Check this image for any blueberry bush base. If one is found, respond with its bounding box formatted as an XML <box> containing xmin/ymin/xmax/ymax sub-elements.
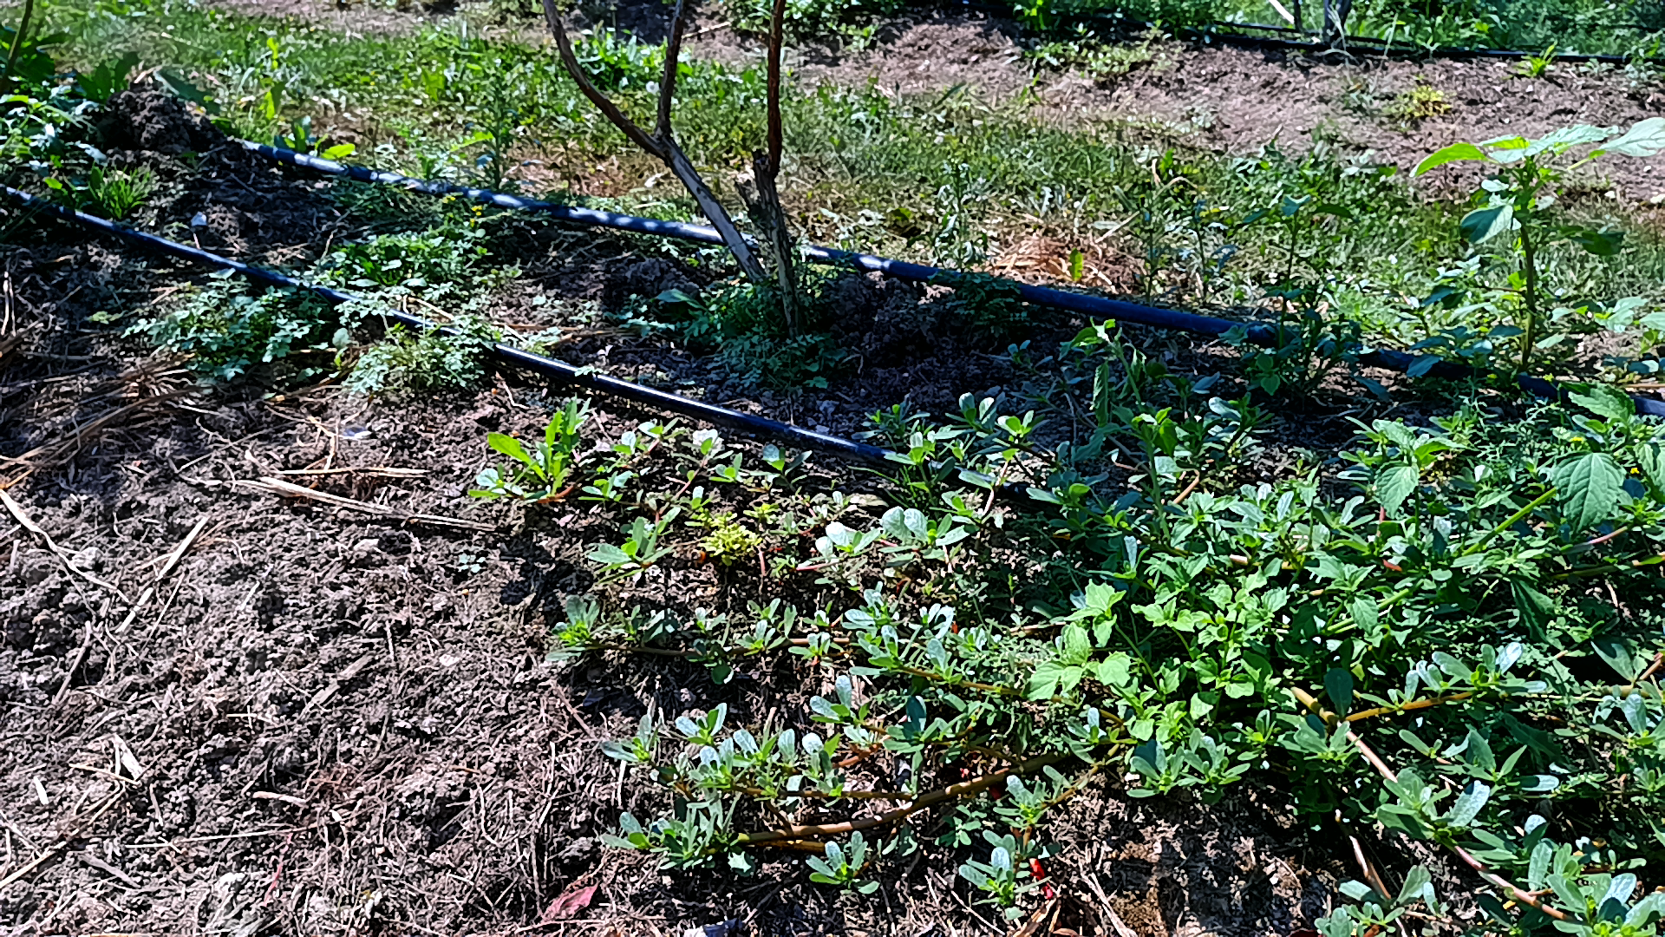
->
<box><xmin>605</xmin><ymin>138</ymin><xmax>880</xmax><ymax>374</ymax></box>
